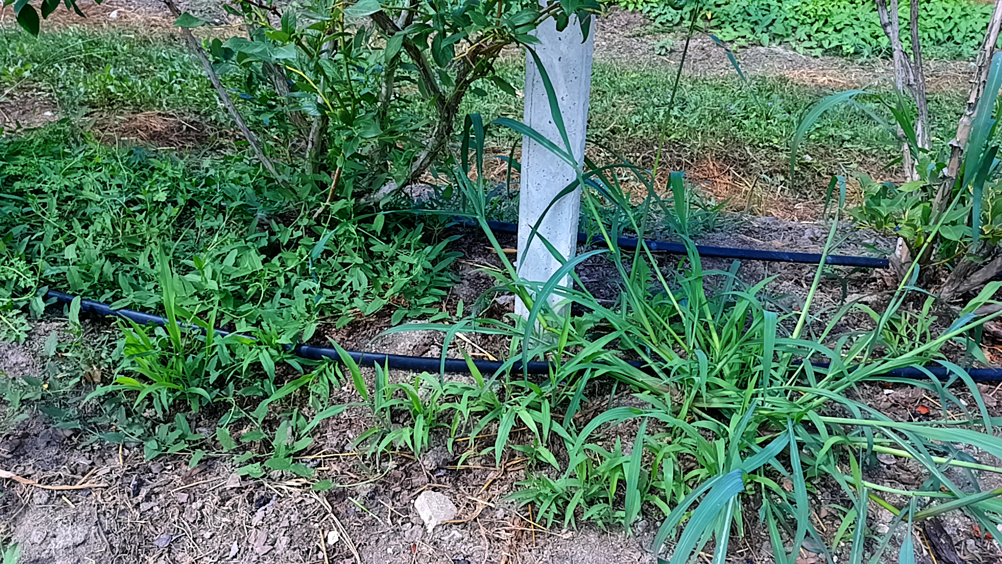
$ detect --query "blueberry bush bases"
[190,43,479,291]
[846,154,999,372]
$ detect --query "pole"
[510,0,608,319]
